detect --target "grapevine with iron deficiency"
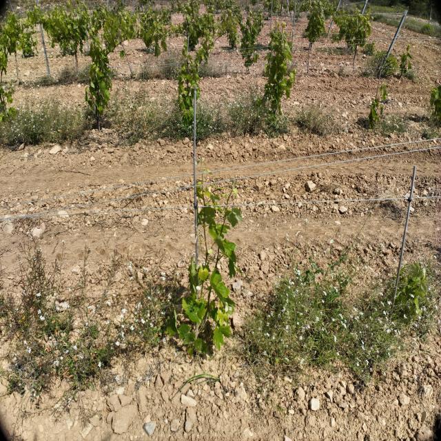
[170,176,251,364]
